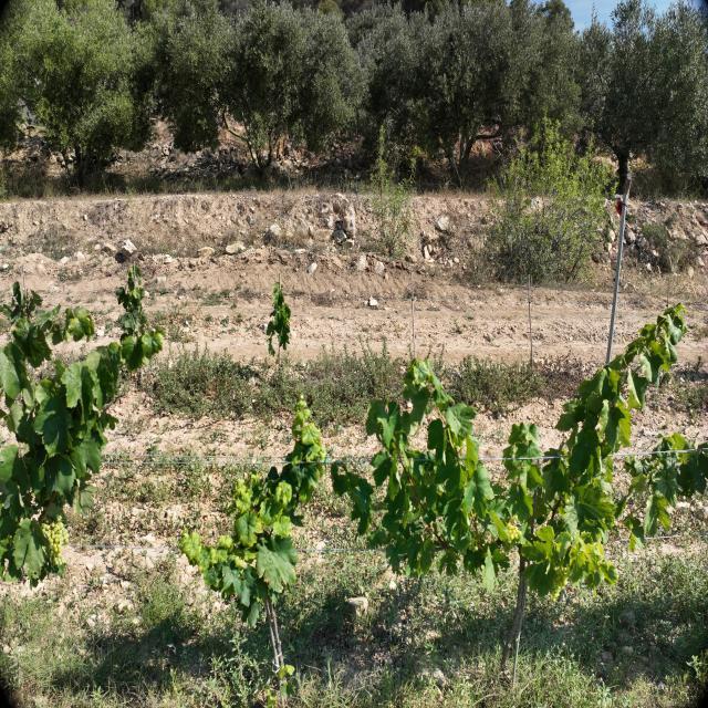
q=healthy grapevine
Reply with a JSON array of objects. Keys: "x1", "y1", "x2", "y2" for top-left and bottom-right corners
[{"x1": 0, "y1": 295, "x2": 146, "y2": 603}]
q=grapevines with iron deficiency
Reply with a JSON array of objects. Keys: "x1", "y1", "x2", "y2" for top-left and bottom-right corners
[
  {"x1": 165, "y1": 402, "x2": 339, "y2": 698},
  {"x1": 352, "y1": 299, "x2": 701, "y2": 696}
]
